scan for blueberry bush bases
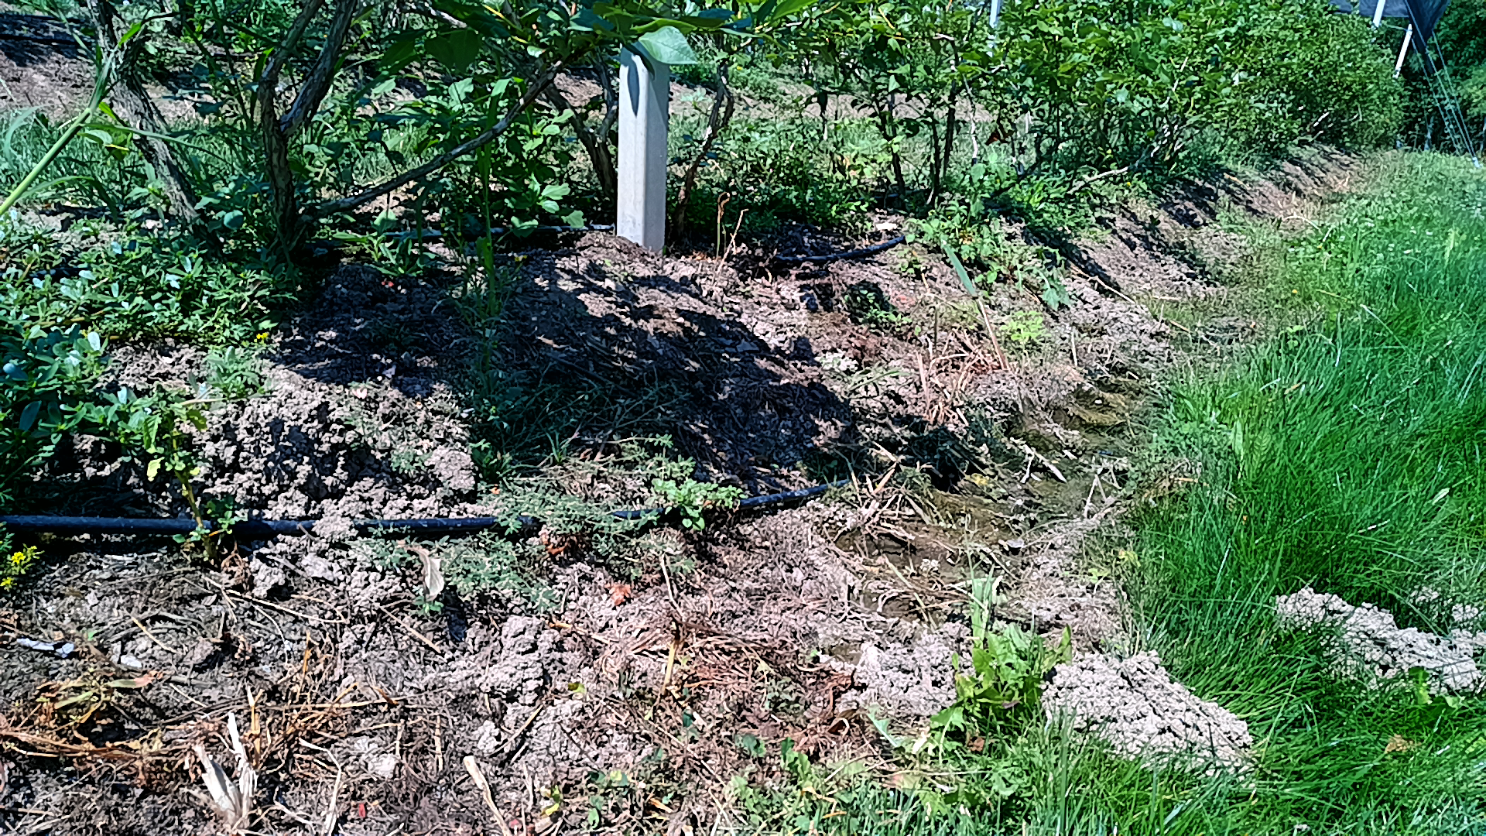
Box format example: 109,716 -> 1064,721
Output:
832,62 -> 1031,233
113,113 -> 384,314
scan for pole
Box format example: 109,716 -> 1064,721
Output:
603,1 -> 690,269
